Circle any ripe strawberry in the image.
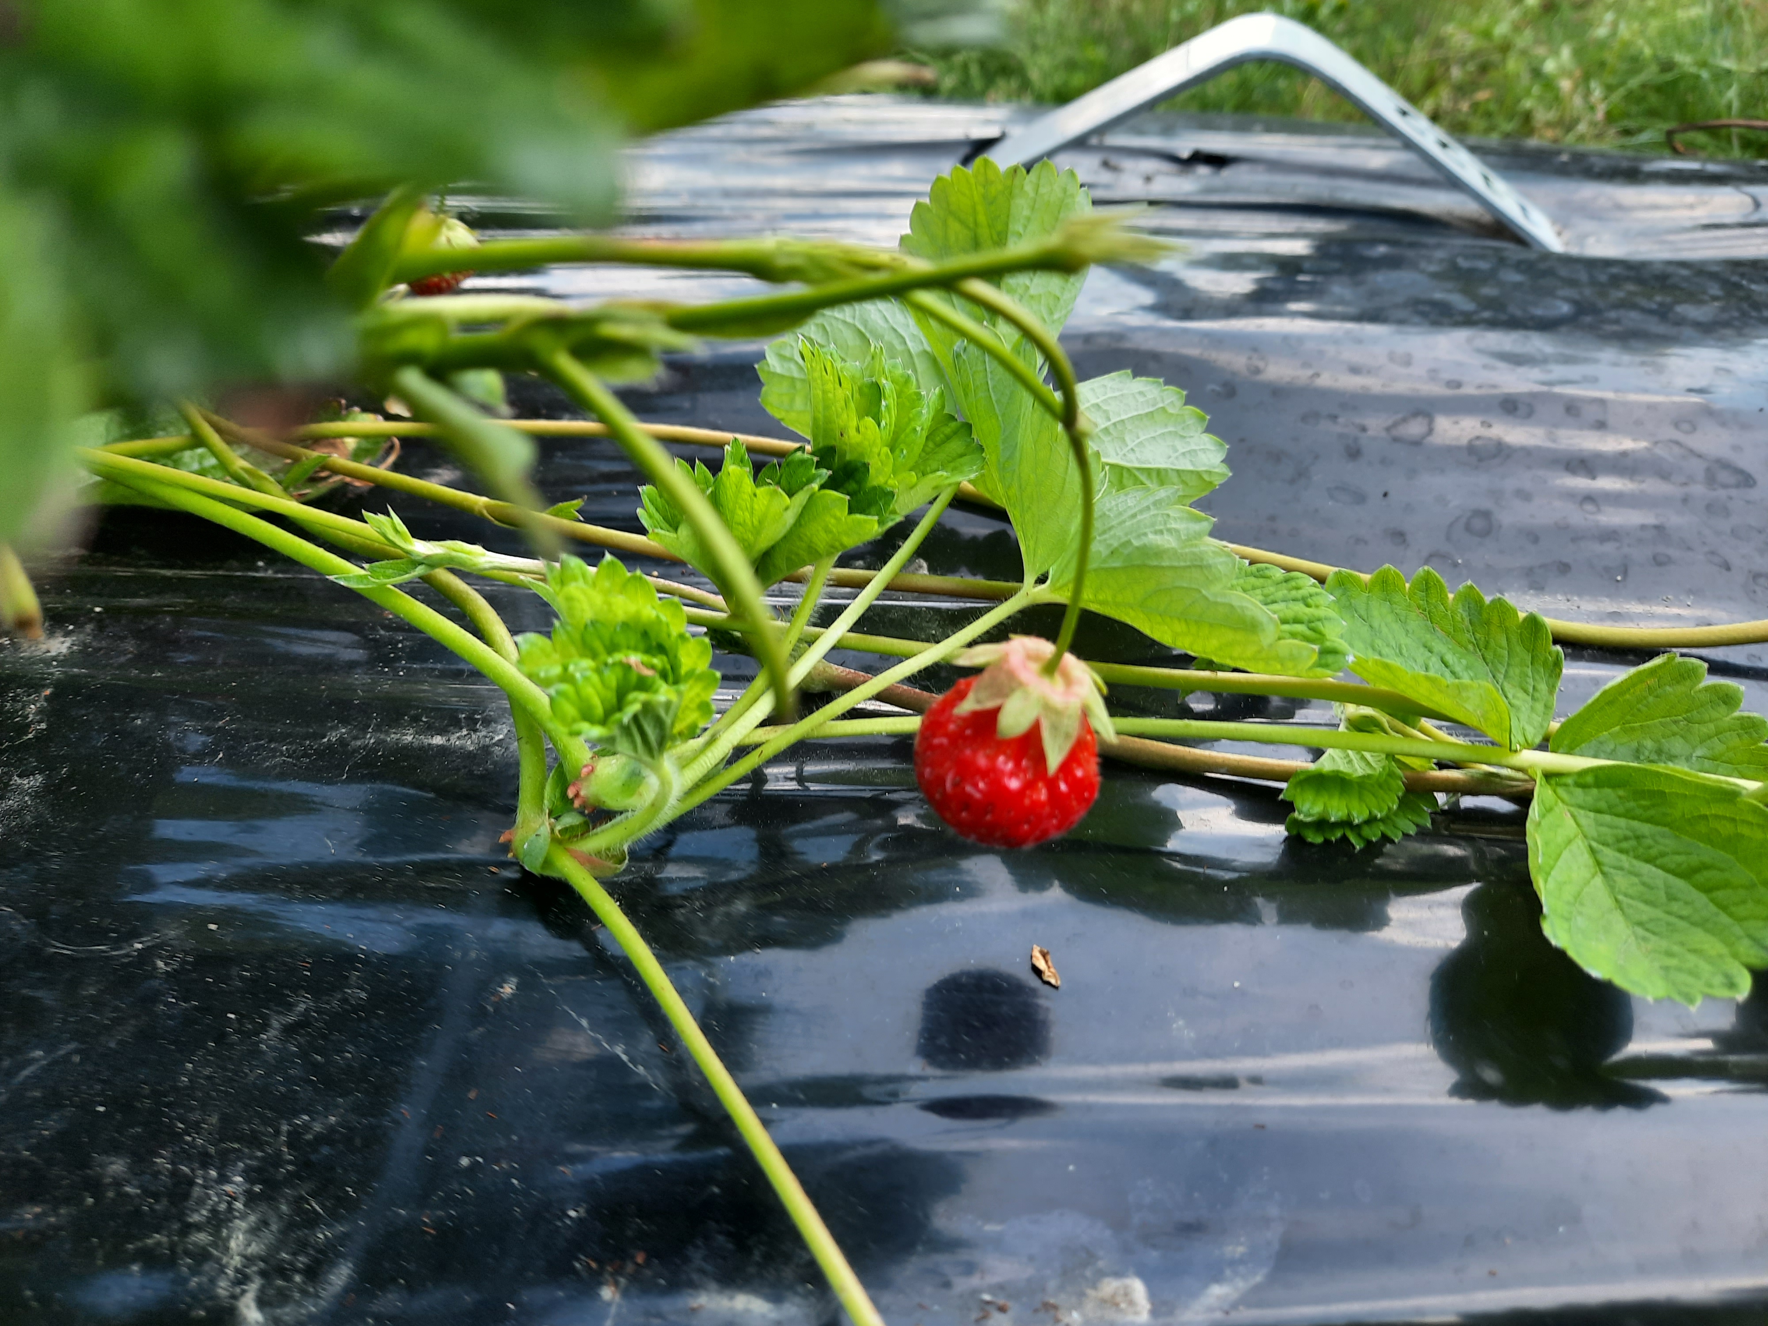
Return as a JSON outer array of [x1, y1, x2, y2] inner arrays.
[[920, 658, 1104, 841]]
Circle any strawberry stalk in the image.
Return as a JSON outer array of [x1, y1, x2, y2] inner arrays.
[[1027, 394, 1107, 713]]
